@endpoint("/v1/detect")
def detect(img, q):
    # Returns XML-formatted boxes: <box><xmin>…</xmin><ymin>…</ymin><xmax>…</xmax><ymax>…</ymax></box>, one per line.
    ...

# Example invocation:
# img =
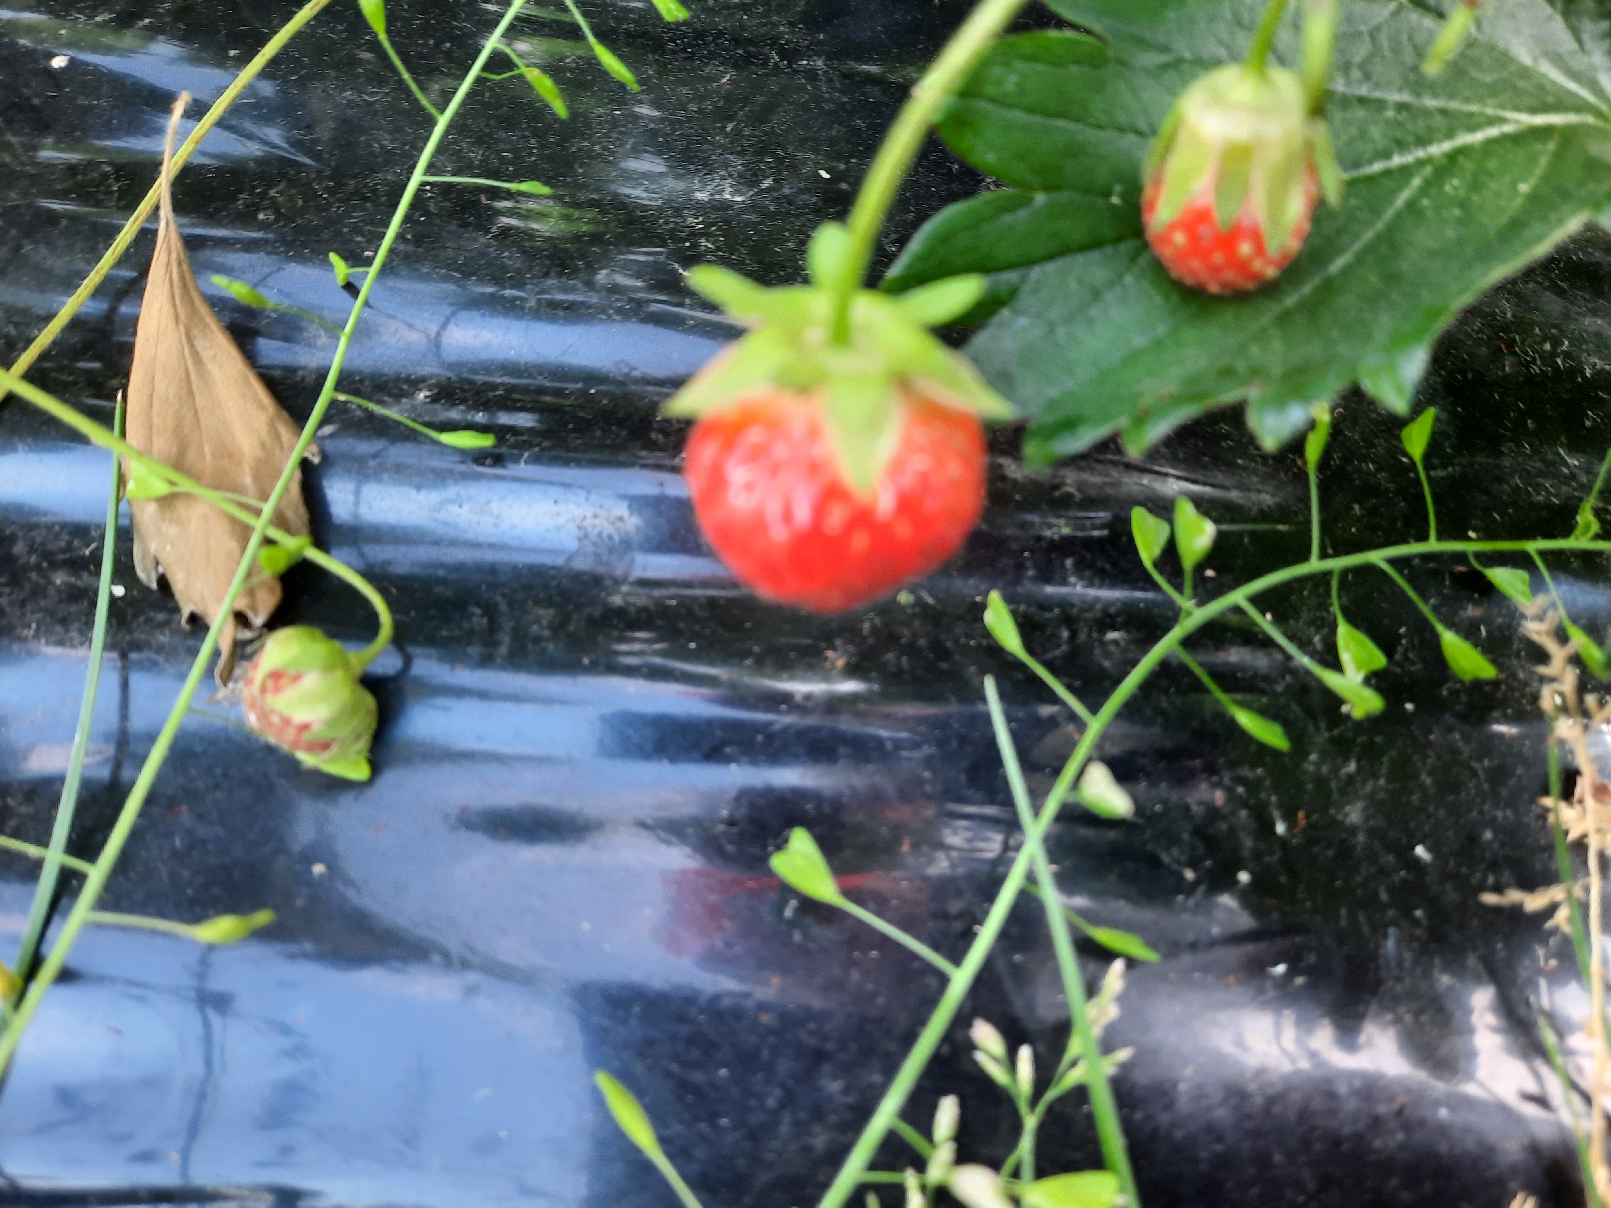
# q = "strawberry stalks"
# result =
<box><xmin>323</xmin><ymin>551</ymin><xmax>396</xmax><ymax>706</ymax></box>
<box><xmin>805</xmin><ymin>50</ymin><xmax>975</xmax><ymax>398</ymax></box>
<box><xmin>1181</xmin><ymin>0</ymin><xmax>1307</xmax><ymax>174</ymax></box>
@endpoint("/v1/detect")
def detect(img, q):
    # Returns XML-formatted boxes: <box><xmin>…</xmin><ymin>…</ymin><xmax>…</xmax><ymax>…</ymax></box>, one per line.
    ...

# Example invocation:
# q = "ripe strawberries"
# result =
<box><xmin>681</xmin><ymin>329</ymin><xmax>985</xmax><ymax>582</ymax></box>
<box><xmin>253</xmin><ymin>628</ymin><xmax>374</xmax><ymax>757</ymax></box>
<box><xmin>1144</xmin><ymin>99</ymin><xmax>1340</xmax><ymax>285</ymax></box>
